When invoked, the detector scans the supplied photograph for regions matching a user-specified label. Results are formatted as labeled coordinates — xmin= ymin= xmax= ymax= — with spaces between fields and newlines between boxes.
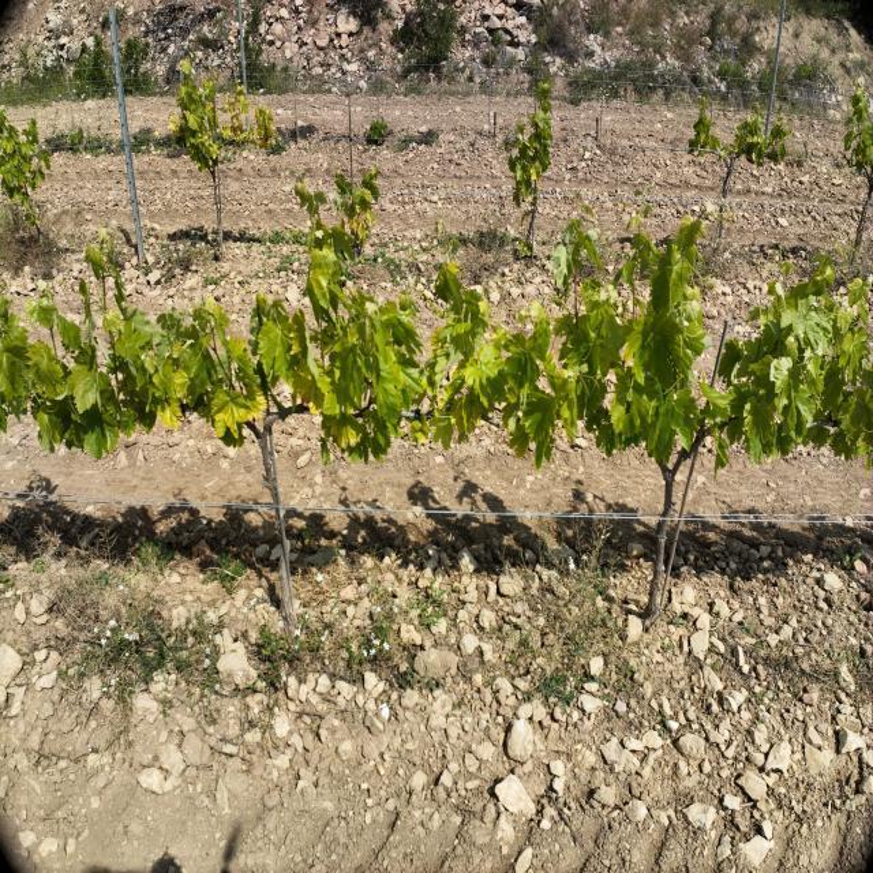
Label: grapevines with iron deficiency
xmin=0 ymin=228 xmax=441 ymax=670
xmin=427 ymin=212 xmax=873 ymax=653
